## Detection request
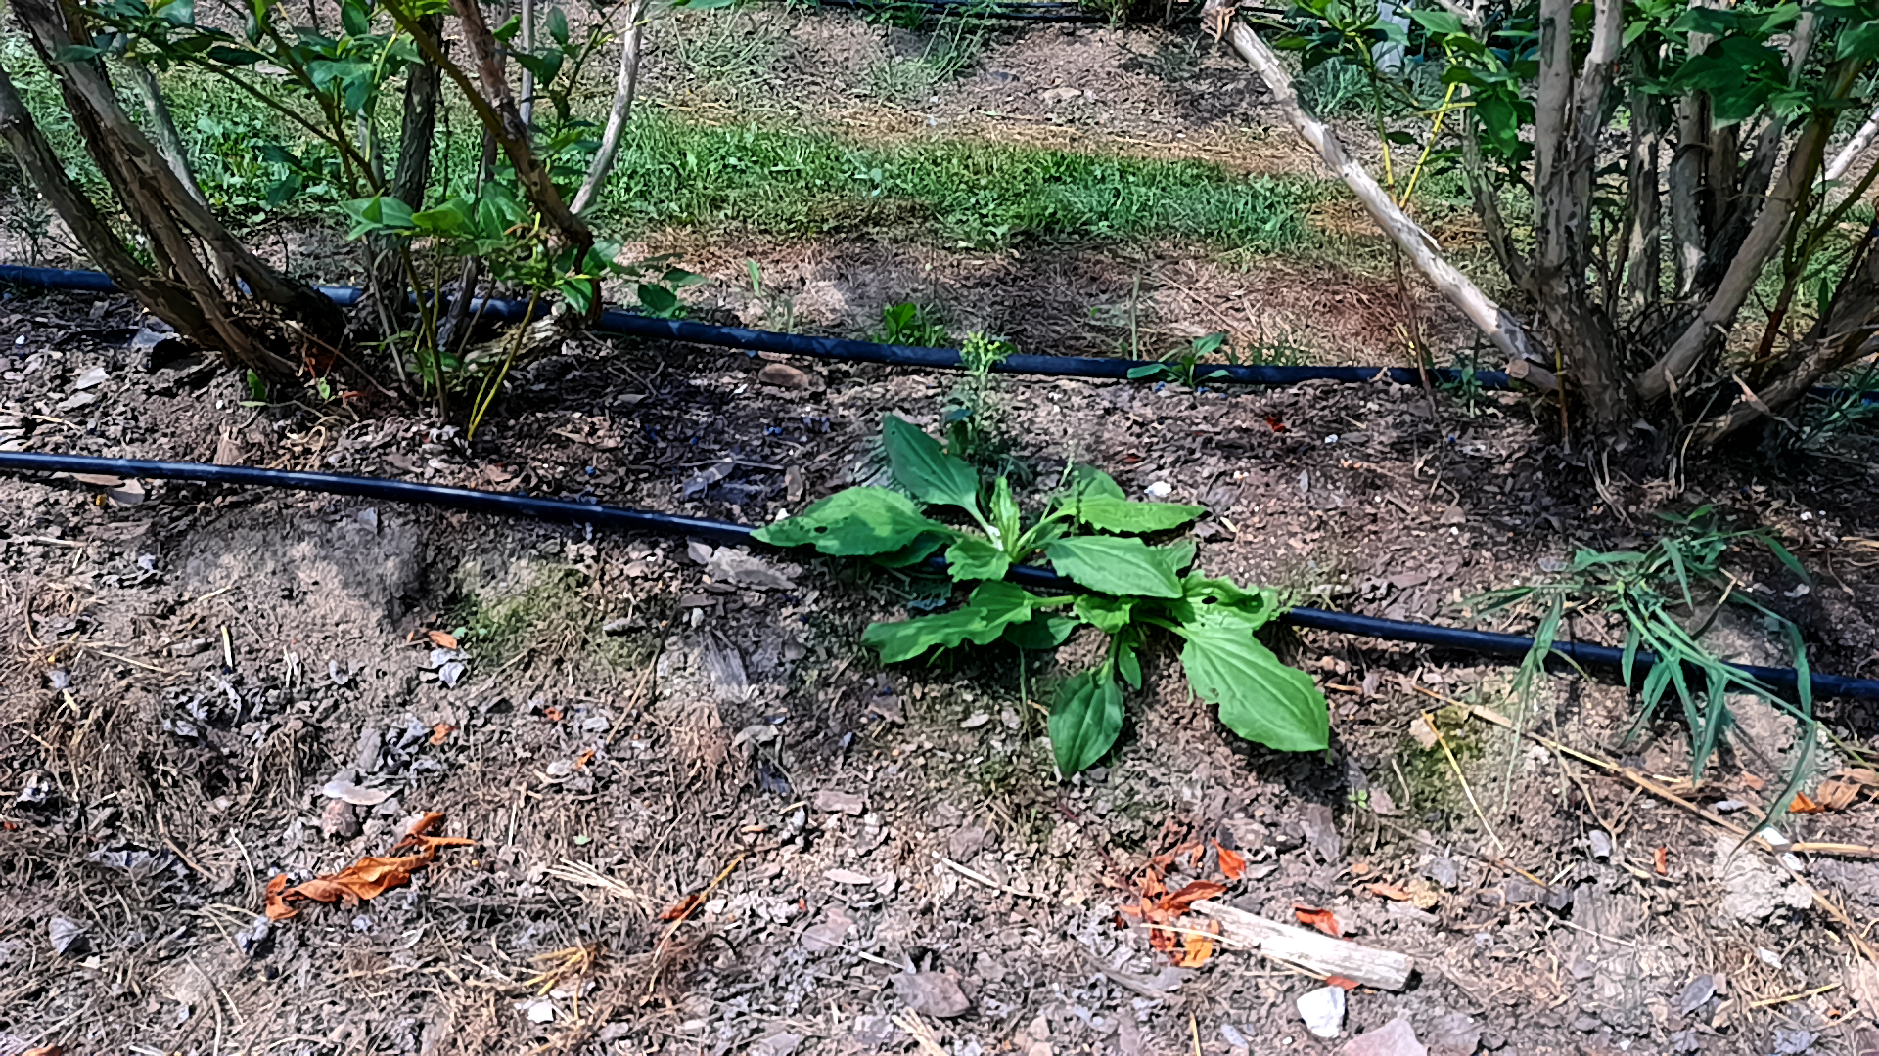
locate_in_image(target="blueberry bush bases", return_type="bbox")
[1376,175,1873,557]
[21,83,646,511]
